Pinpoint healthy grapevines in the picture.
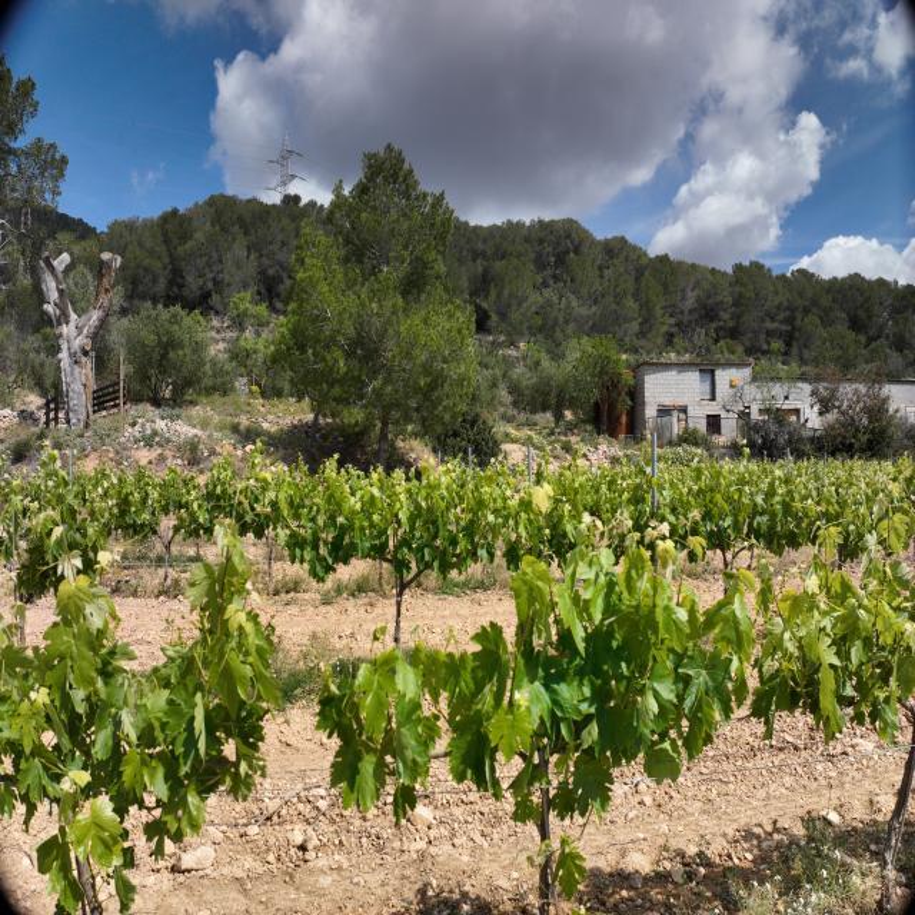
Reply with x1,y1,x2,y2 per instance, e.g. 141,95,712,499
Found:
317,512,761,915
0,519,297,915
755,519,915,914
